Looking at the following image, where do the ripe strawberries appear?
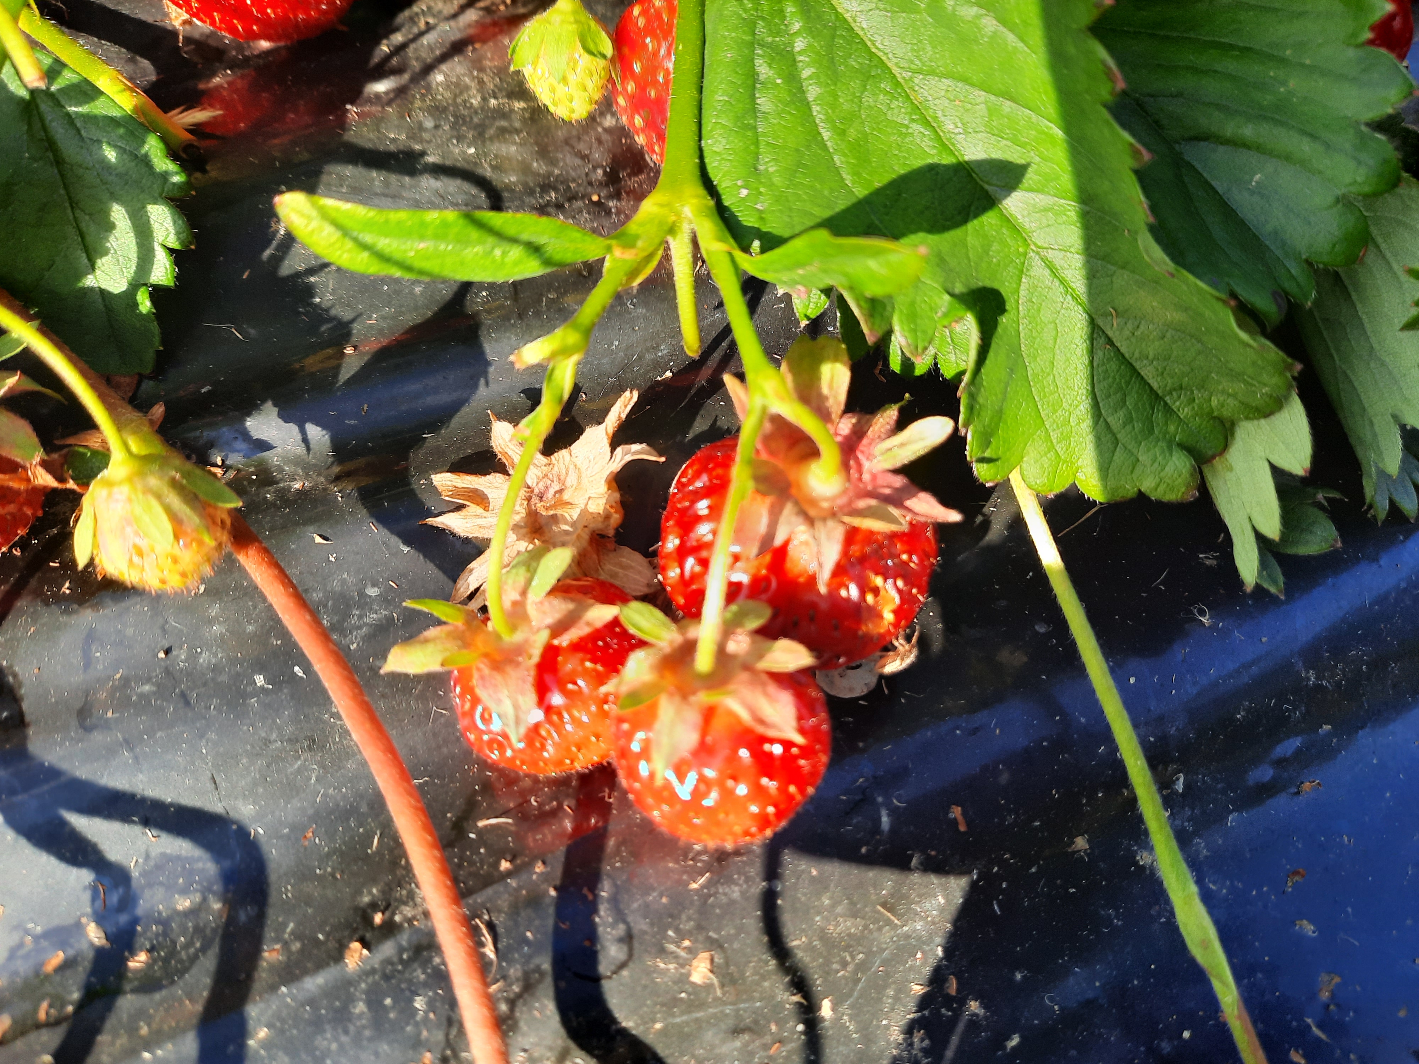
[428,593,651,767]
[673,443,933,676]
[625,629,826,827]
[598,7,747,169]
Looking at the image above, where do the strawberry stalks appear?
[676,446,762,714]
[494,401,567,662]
[757,393,857,528]
[29,306,147,484]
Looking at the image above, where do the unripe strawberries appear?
[91,467,227,595]
[517,4,611,119]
